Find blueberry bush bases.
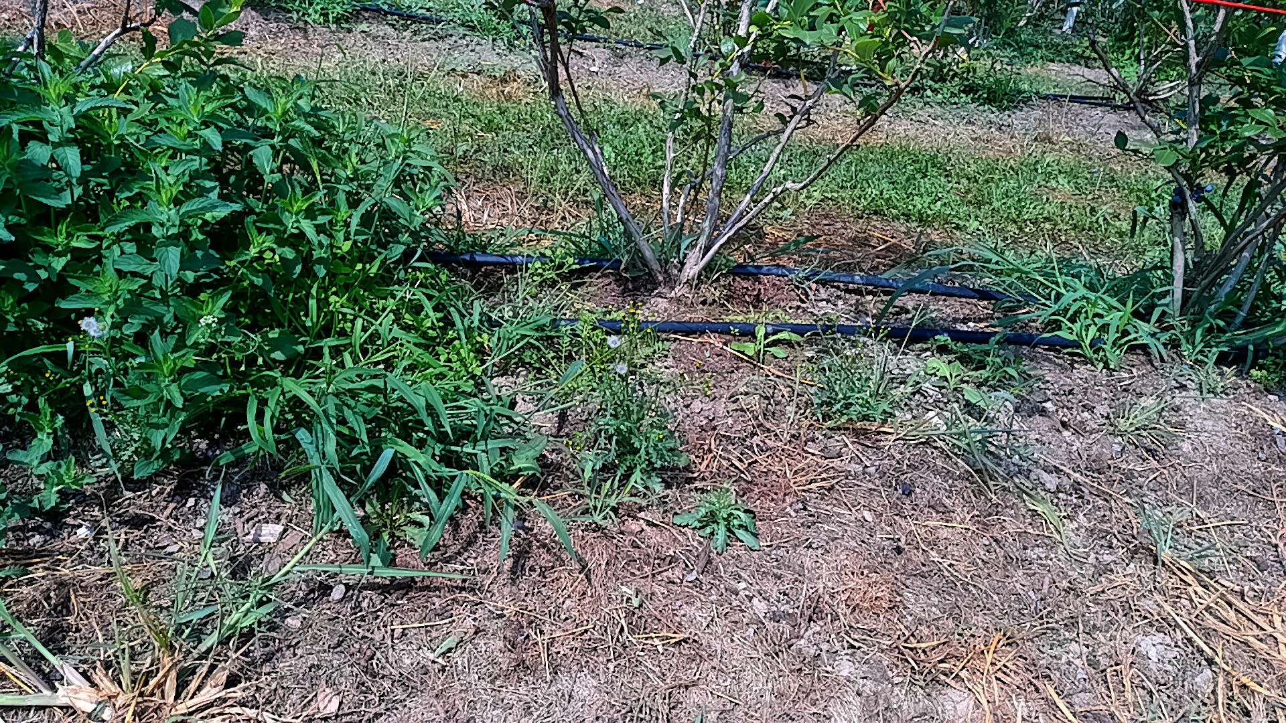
[1087,55,1175,118]
[1117,186,1286,388]
[0,22,119,261]
[554,133,815,337]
